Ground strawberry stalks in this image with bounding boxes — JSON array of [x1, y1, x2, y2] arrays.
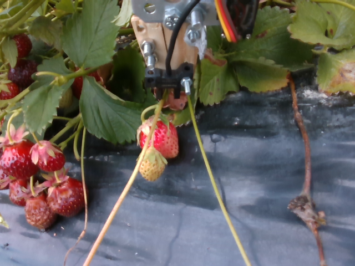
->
[[149, 121, 159, 163], [54, 168, 67, 191], [25, 183, 40, 206], [5, 111, 18, 154], [140, 101, 158, 129], [26, 114, 49, 150]]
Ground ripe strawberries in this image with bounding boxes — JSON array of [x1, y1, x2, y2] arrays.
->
[[3, 31, 34, 58], [141, 118, 183, 154], [49, 175, 85, 216], [0, 142, 31, 178], [0, 79, 20, 103], [32, 139, 66, 172], [71, 60, 103, 100]]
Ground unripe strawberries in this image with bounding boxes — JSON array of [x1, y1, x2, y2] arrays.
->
[[20, 195, 63, 232], [6, 61, 45, 90], [138, 149, 164, 180], [6, 180, 34, 204]]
